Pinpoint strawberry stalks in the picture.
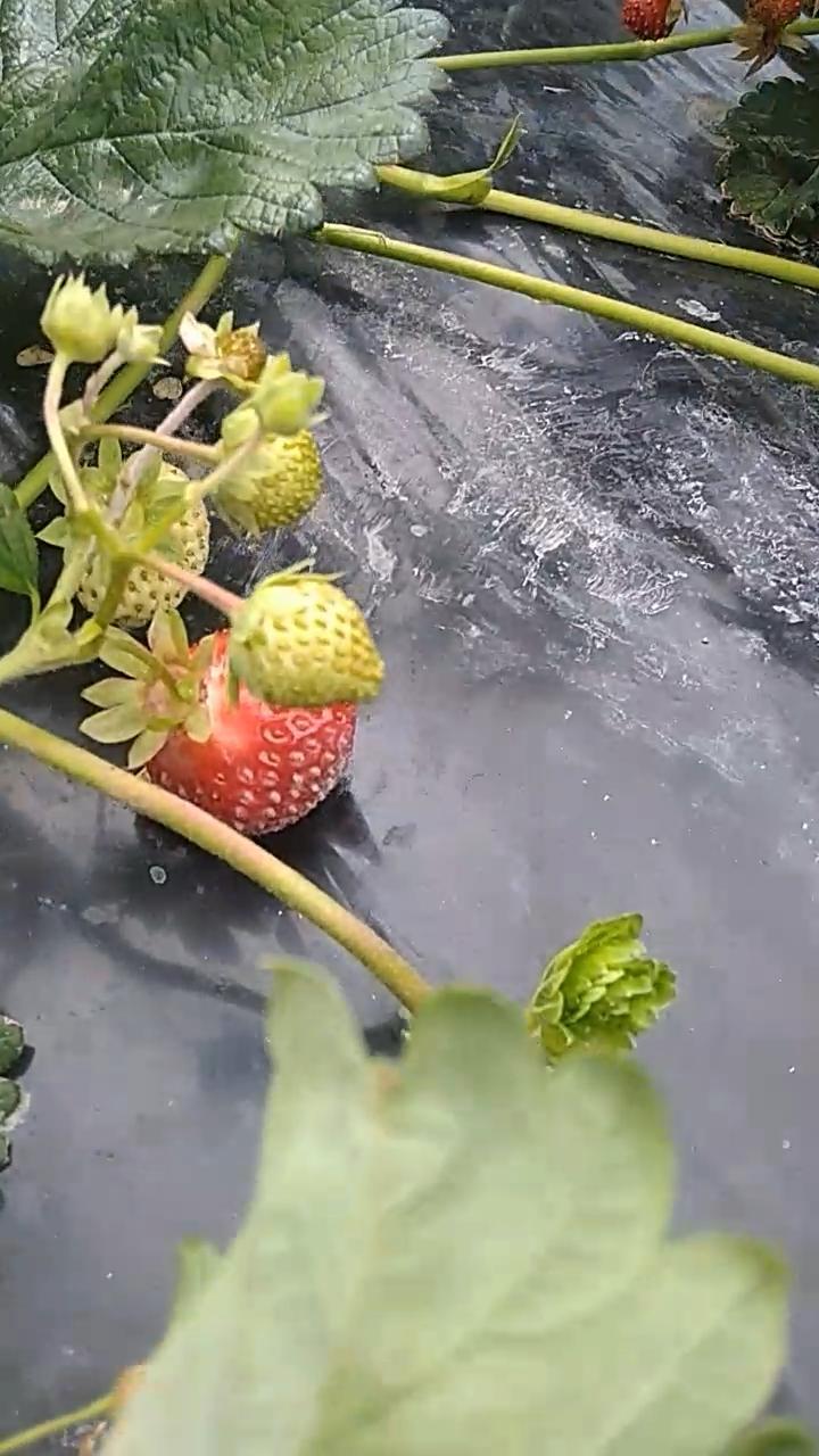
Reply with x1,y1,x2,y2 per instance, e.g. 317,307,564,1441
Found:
153,408,249,479
101,610,218,743
181,563,286,645
38,317,101,471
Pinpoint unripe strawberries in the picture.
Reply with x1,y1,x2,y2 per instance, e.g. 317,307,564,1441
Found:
225,421,326,531
239,583,396,710
67,460,215,635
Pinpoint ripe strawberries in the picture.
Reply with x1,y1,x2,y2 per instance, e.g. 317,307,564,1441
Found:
736,0,816,42
152,634,354,835
614,0,680,45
